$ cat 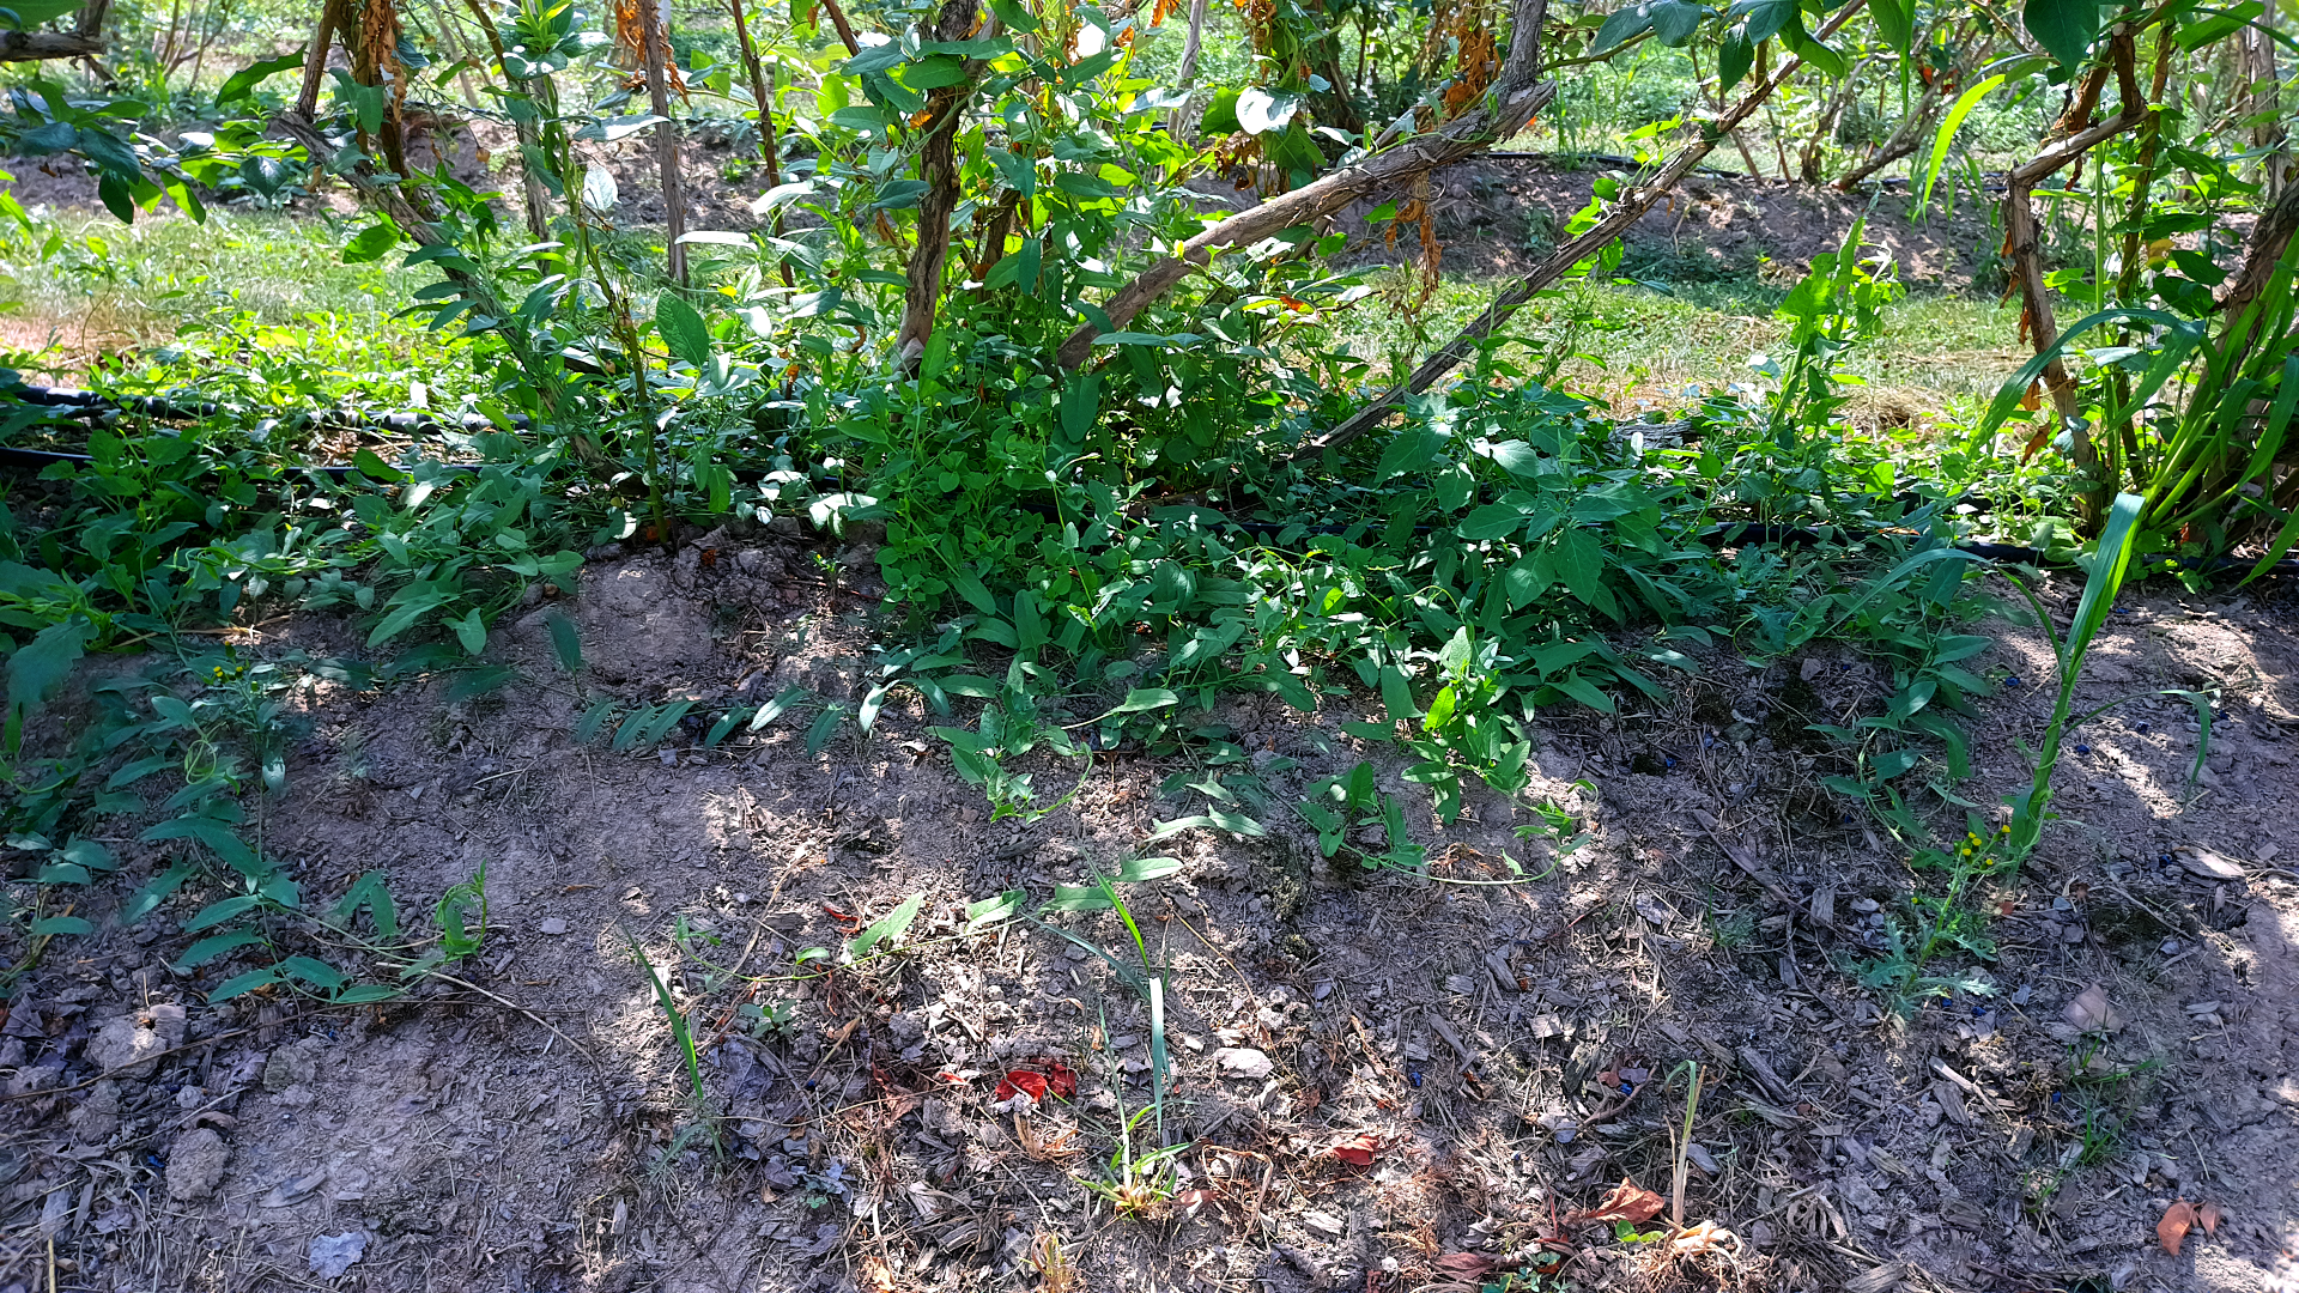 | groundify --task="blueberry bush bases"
[1719,114,1921,231]
[1986,317,2299,666]
[59,32,228,135]
[472,173,1454,644]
